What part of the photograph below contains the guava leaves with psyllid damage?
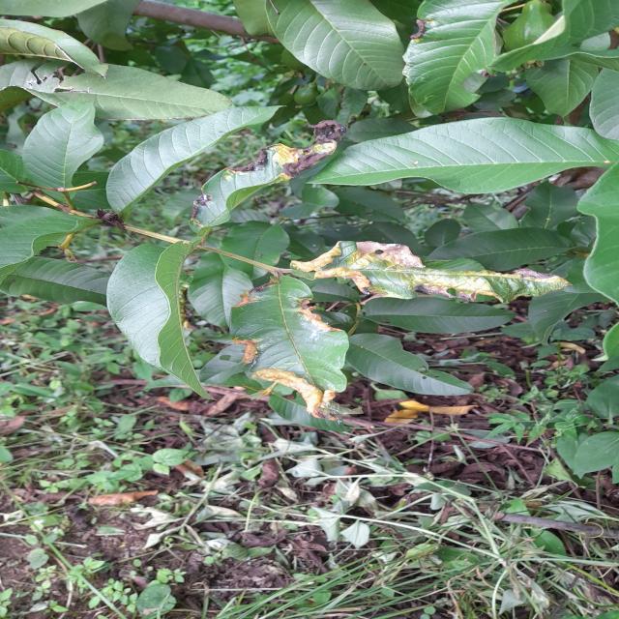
[282,237,581,308]
[225,273,362,422]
